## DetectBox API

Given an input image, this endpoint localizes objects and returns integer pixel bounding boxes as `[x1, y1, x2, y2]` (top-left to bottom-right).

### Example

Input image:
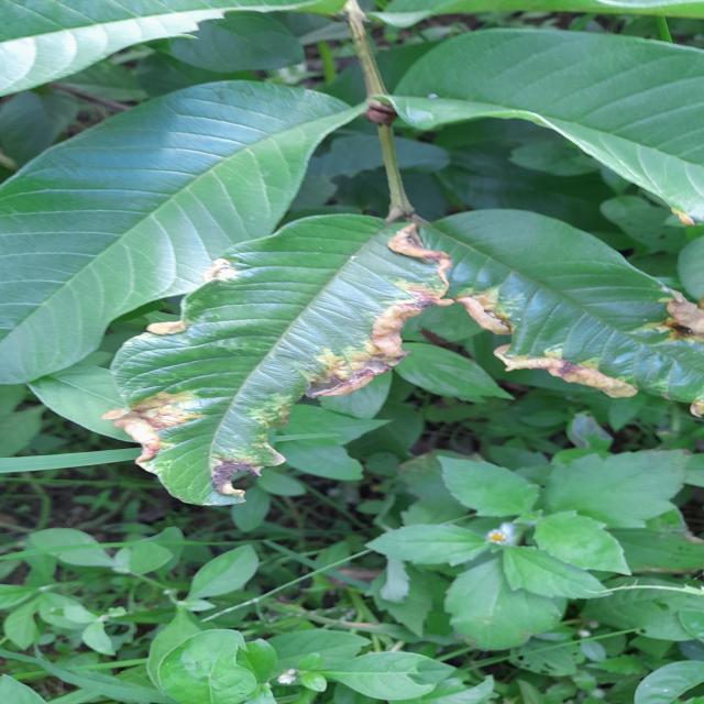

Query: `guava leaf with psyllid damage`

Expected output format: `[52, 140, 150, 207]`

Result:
[92, 198, 458, 515]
